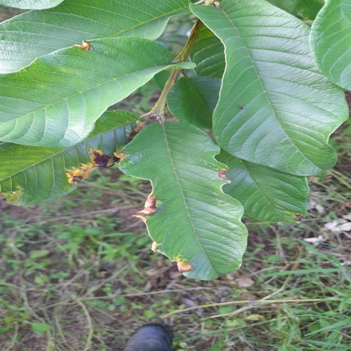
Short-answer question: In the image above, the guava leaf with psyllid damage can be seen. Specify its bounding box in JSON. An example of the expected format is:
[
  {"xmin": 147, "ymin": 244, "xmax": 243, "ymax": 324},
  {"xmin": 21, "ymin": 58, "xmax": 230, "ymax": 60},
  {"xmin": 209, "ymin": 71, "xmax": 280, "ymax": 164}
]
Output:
[{"xmin": 115, "ymin": 116, "xmax": 257, "ymax": 287}]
